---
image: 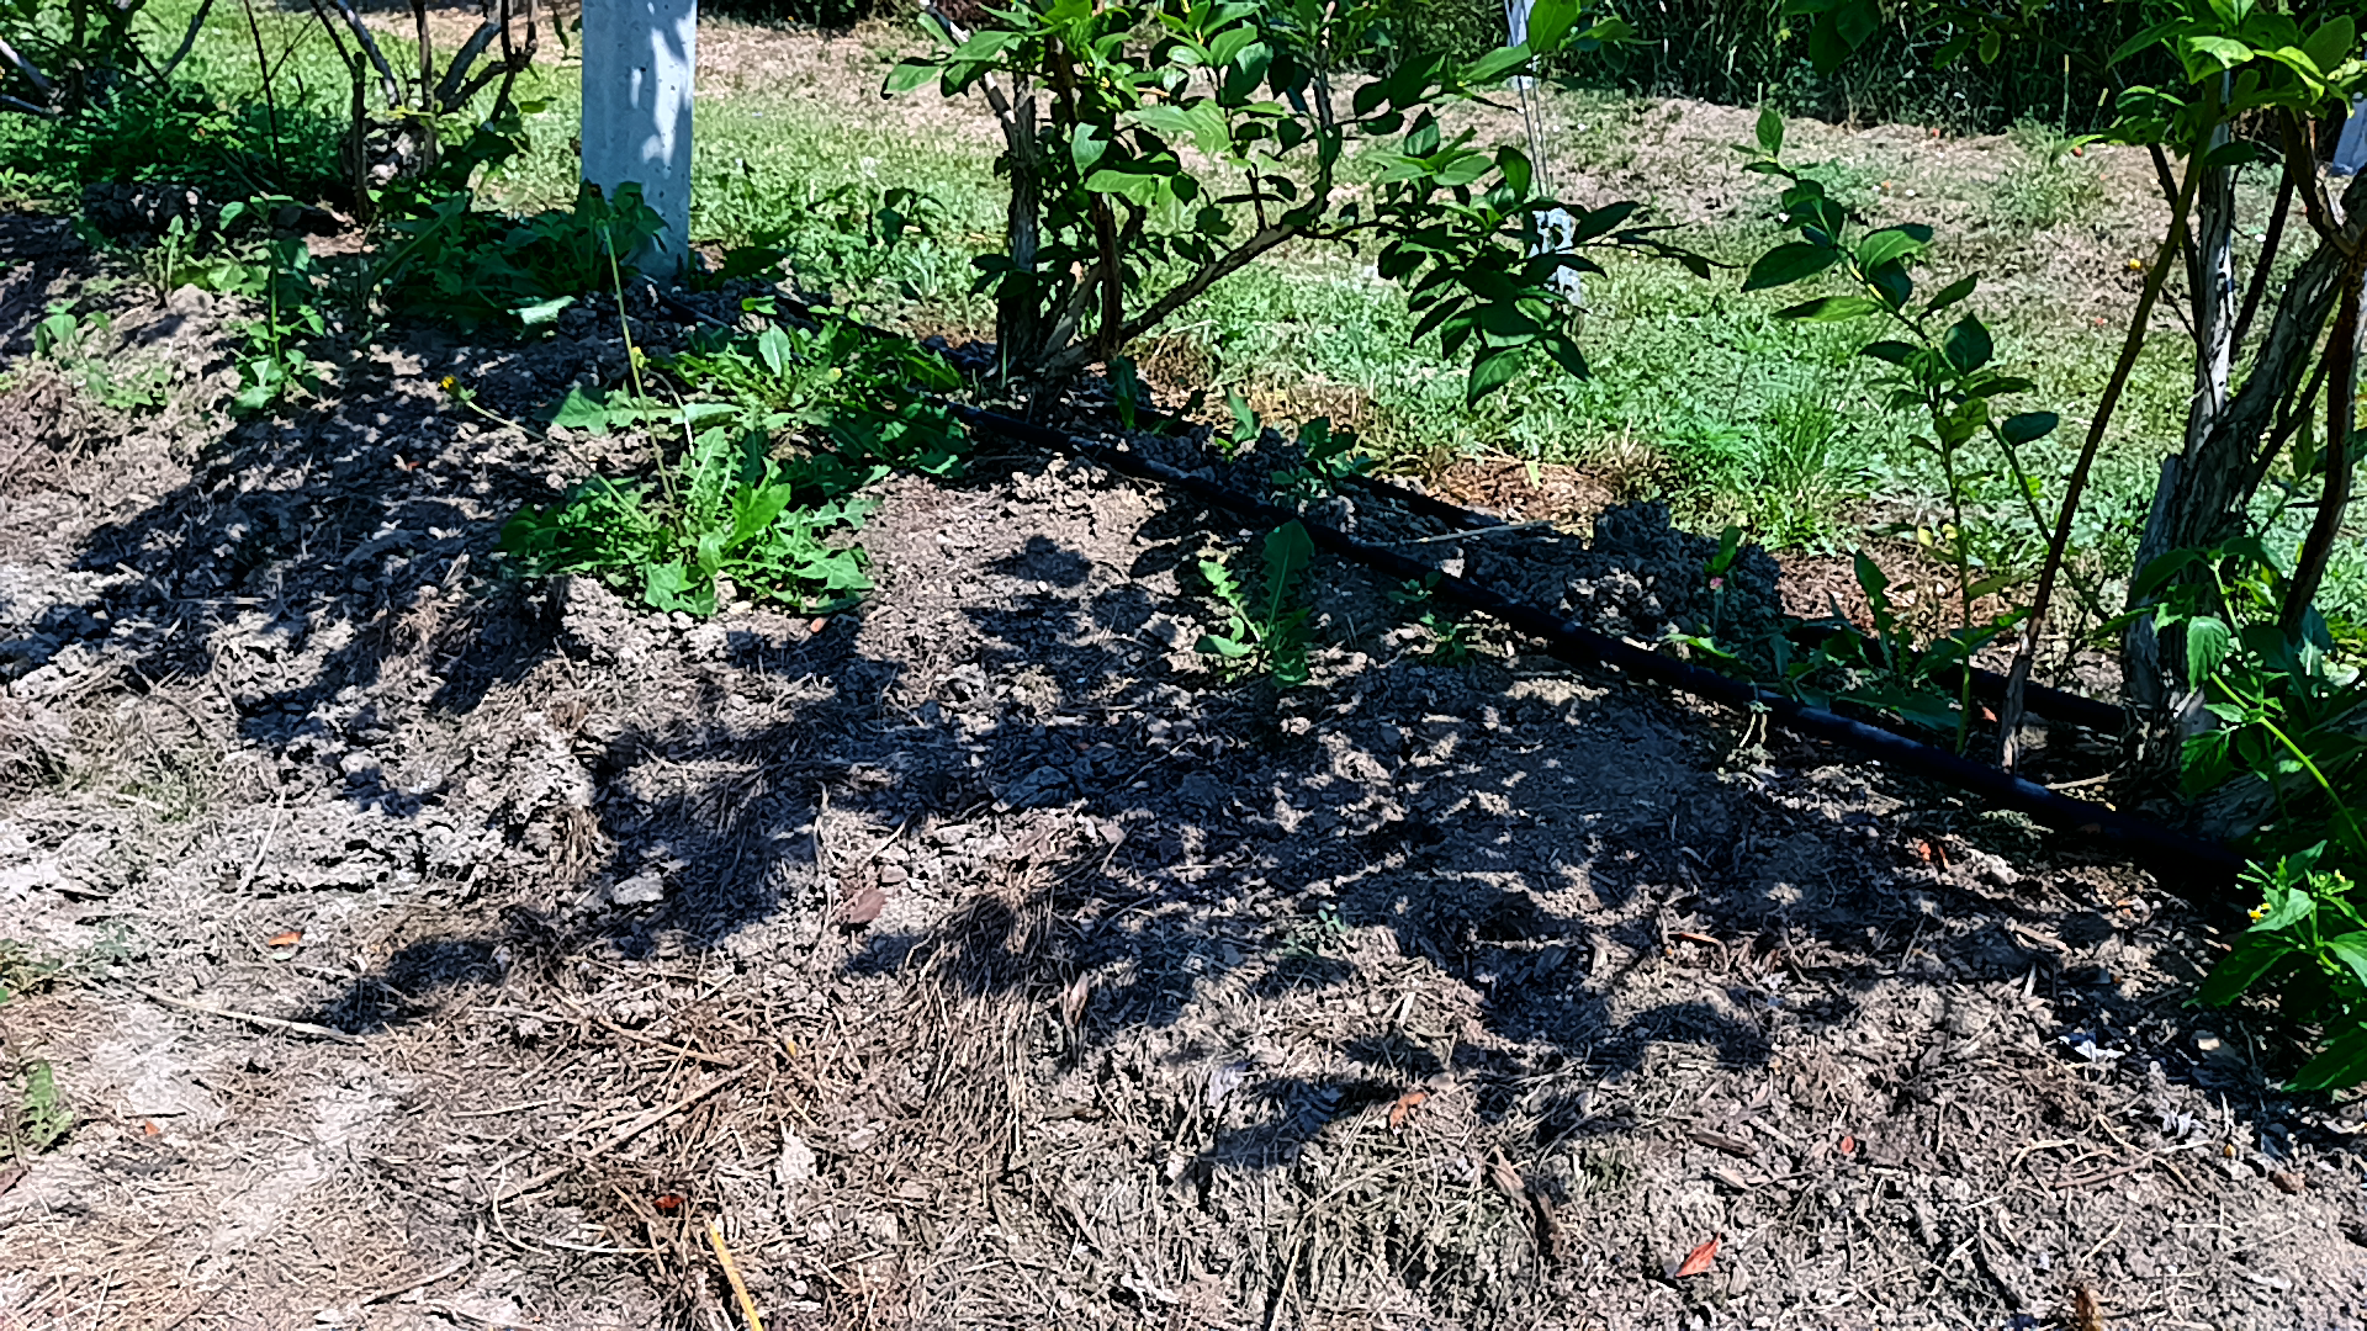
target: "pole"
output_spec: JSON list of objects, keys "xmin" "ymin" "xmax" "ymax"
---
[{"xmin": 549, "ymin": 0, "xmax": 715, "ymax": 320}]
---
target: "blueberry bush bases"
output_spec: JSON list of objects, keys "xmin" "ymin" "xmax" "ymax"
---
[
  {"xmin": 268, "ymin": 14, "xmax": 523, "ymax": 259},
  {"xmin": 2041, "ymin": 456, "xmax": 2364, "ymax": 905},
  {"xmin": 906, "ymin": 153, "xmax": 1220, "ymax": 472}
]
